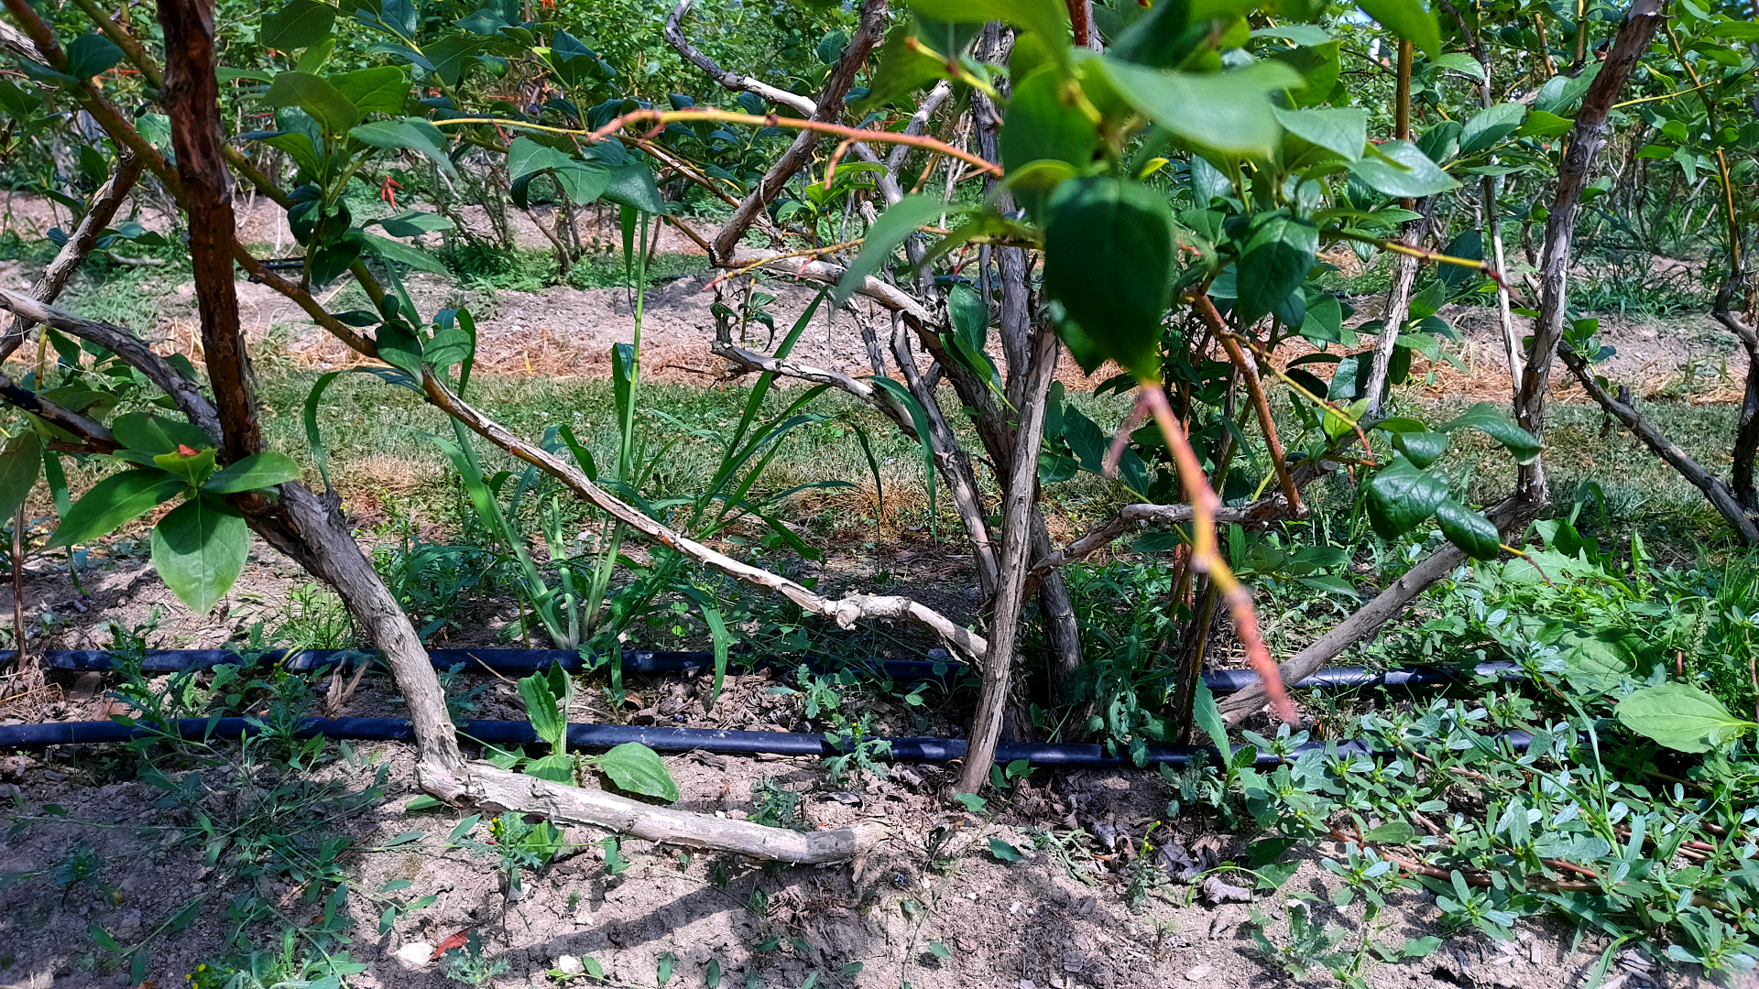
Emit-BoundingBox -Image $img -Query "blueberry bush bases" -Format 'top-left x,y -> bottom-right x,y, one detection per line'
421,191 -> 617,292
1675,396 -> 1758,595
755,443 -> 1429,928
